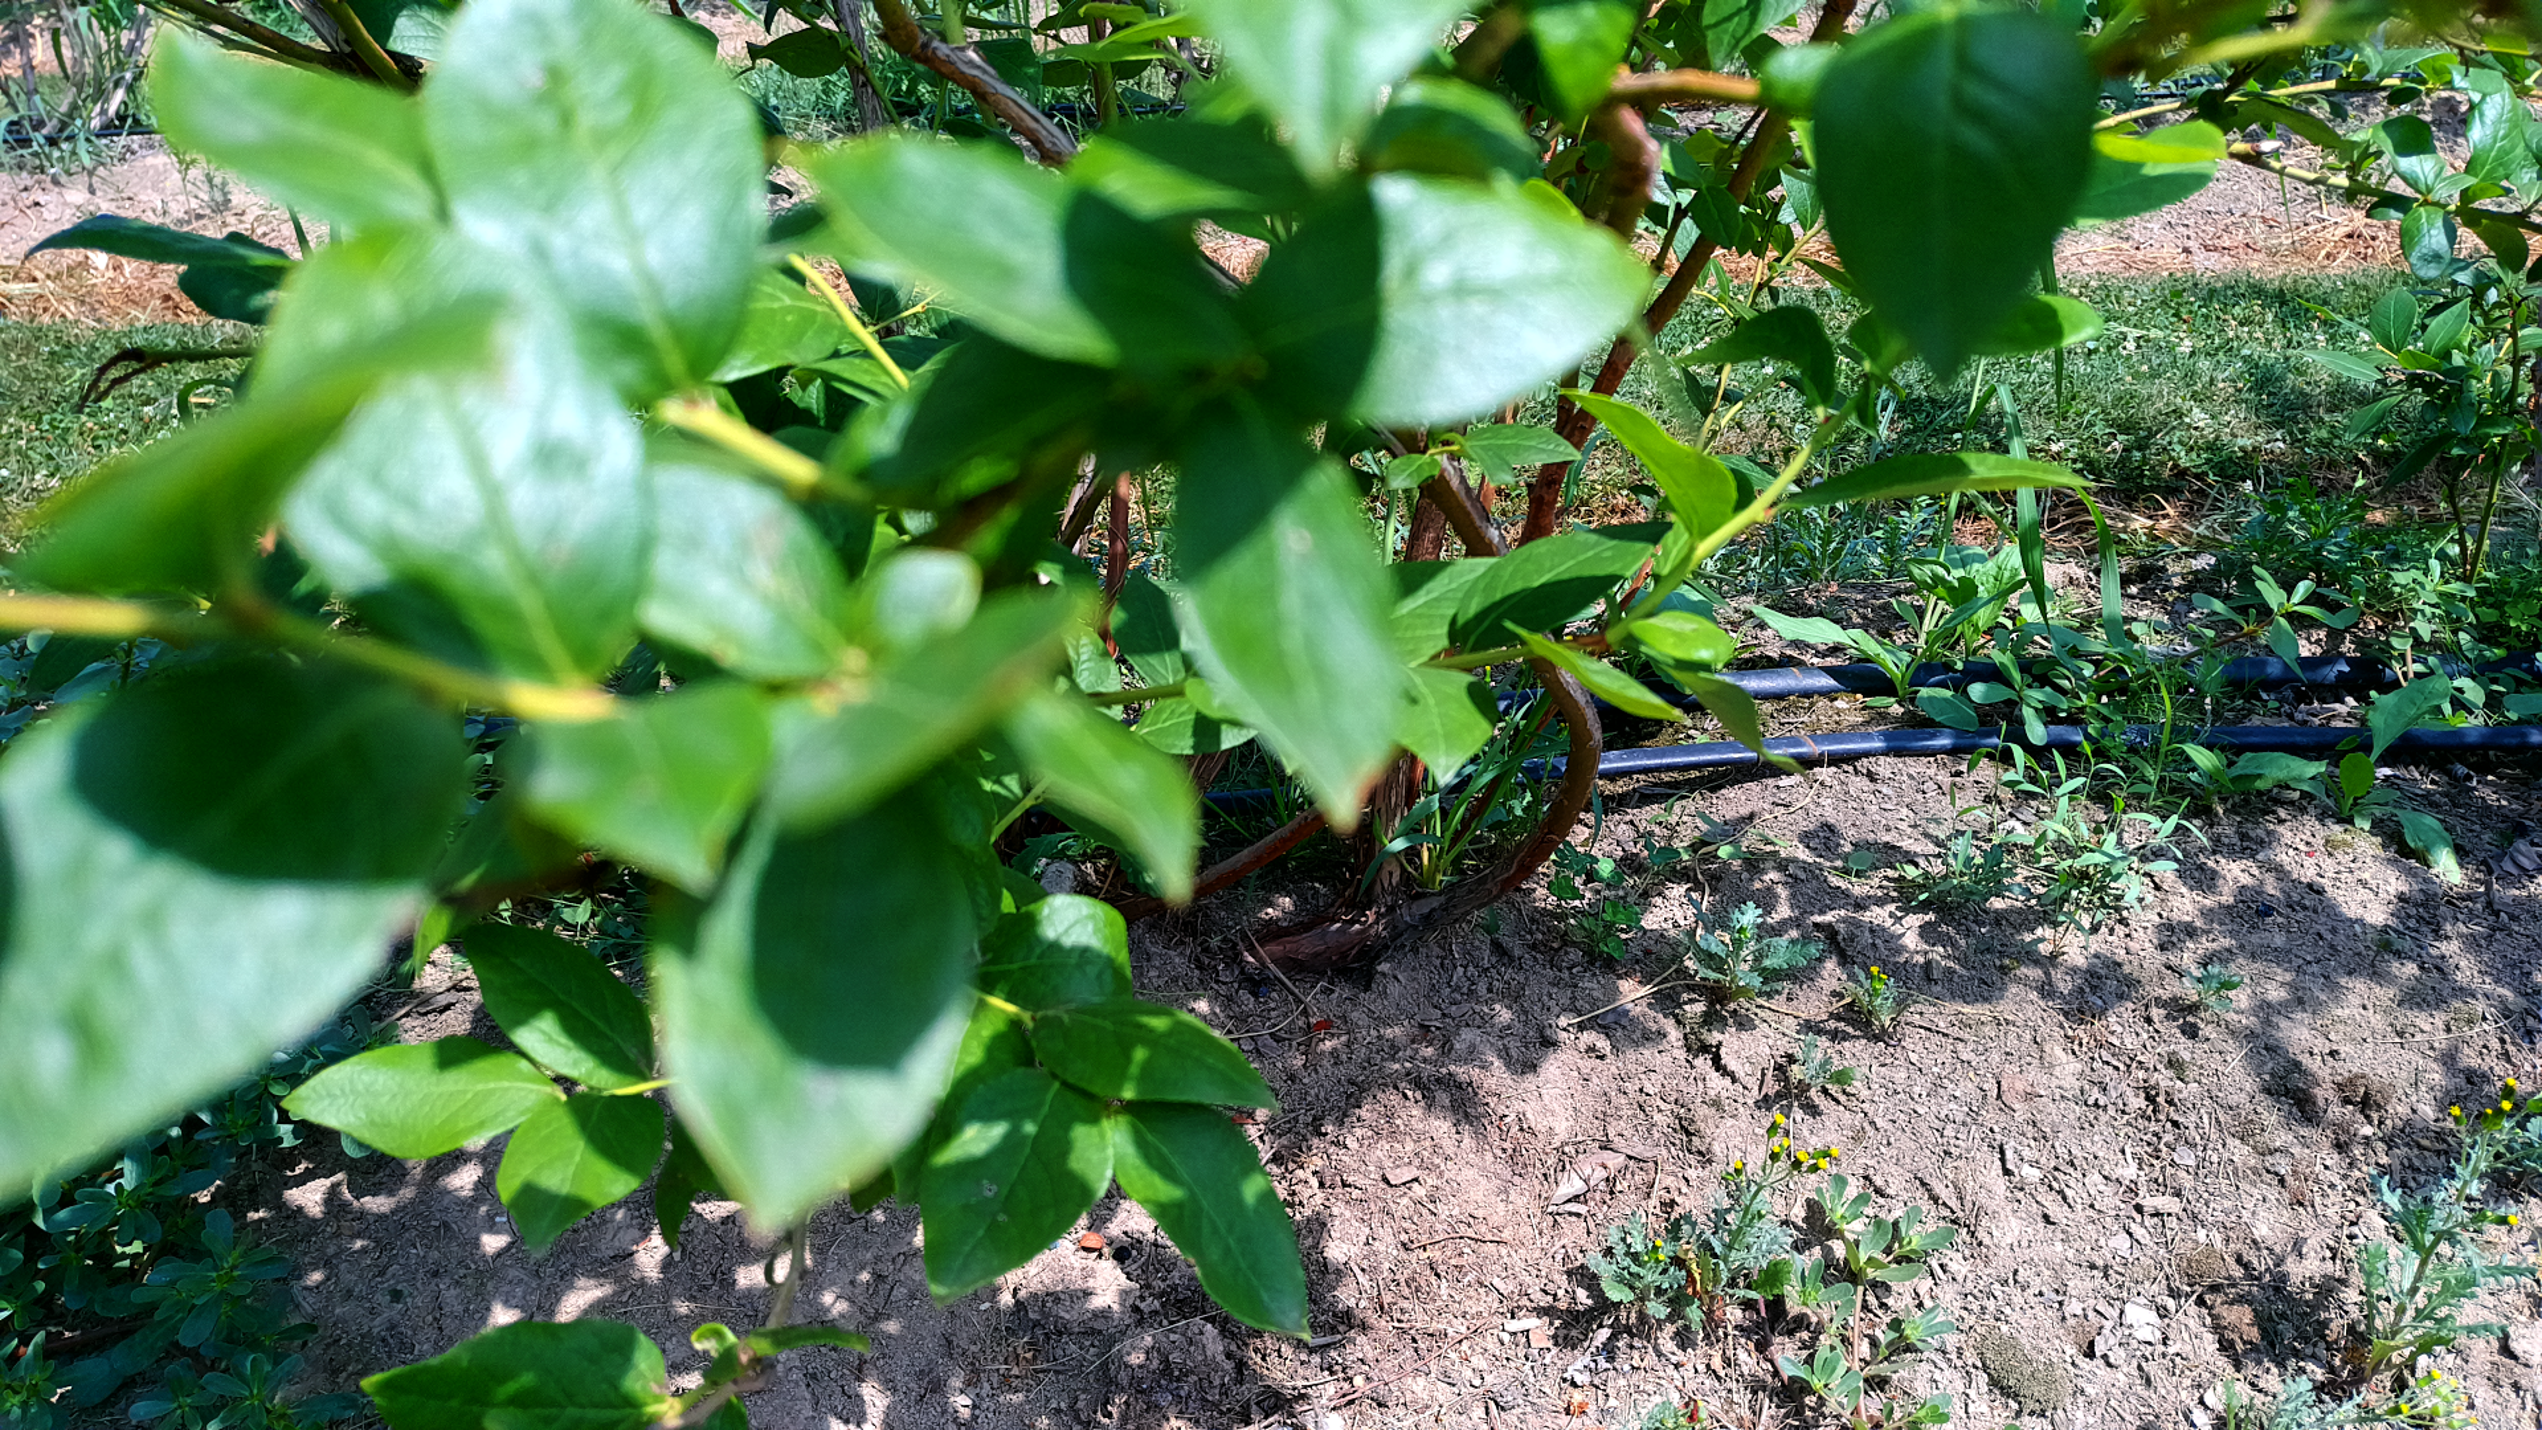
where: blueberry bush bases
[1008,583,1635,1045]
[11,66,158,173]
